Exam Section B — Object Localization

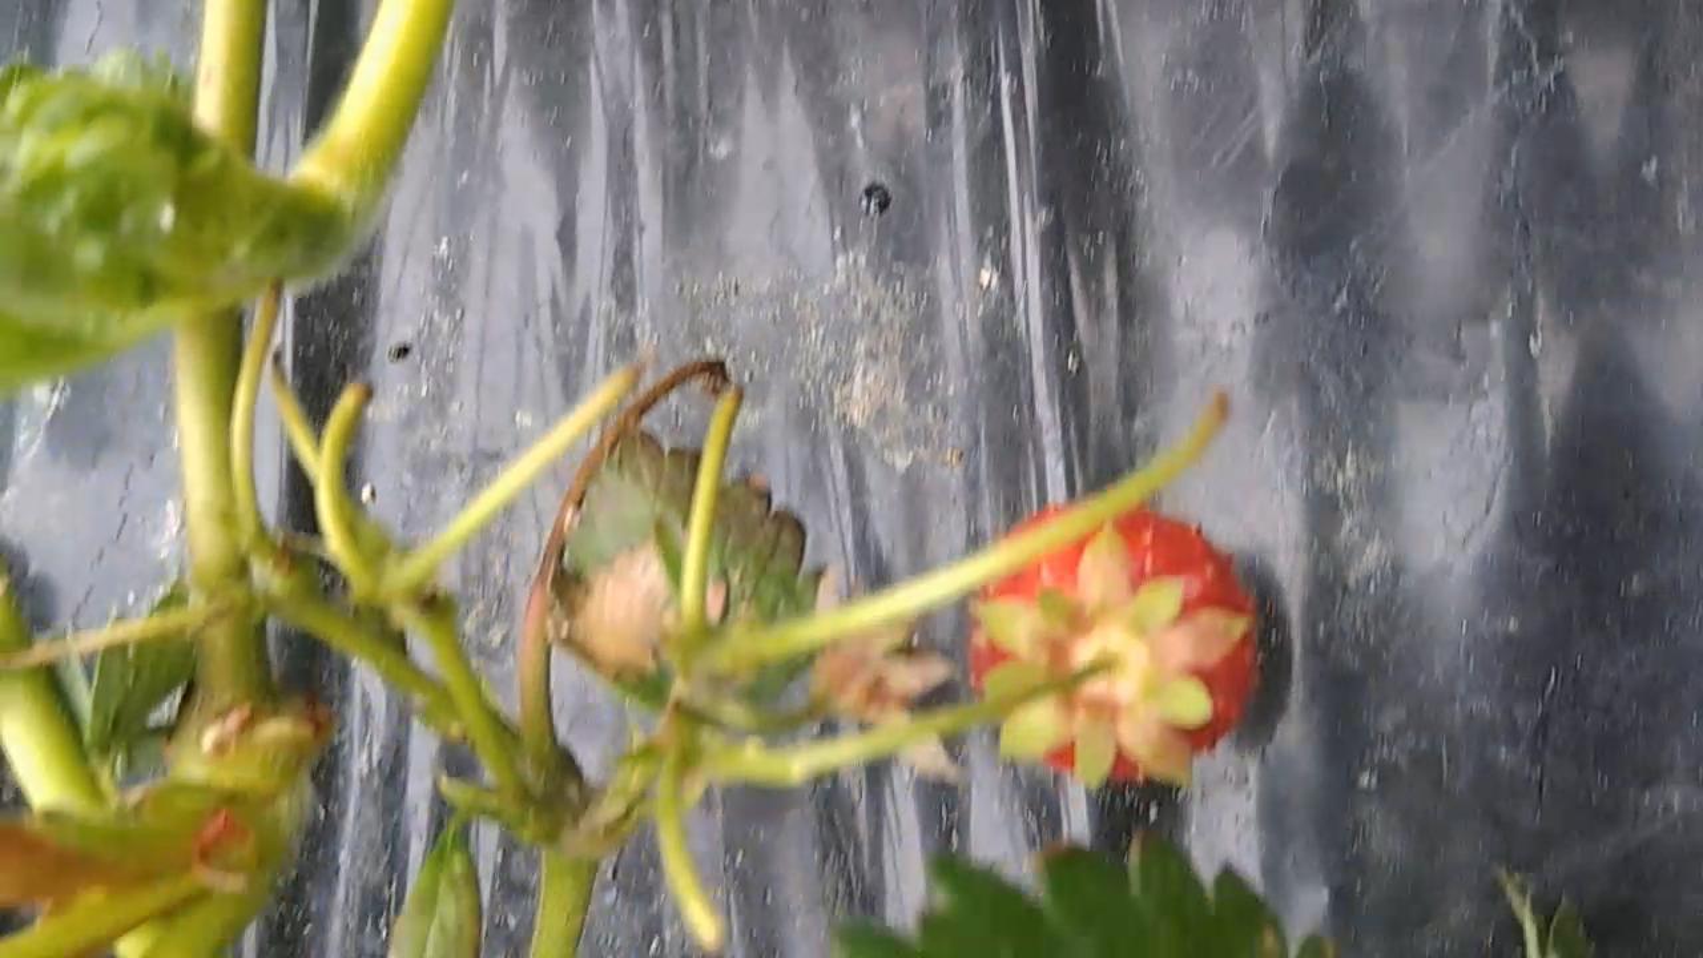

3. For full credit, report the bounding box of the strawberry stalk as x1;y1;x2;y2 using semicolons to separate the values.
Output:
798;619;1127;794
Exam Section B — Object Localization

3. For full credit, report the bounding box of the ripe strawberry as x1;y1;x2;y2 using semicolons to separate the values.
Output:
973;503;1291;806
